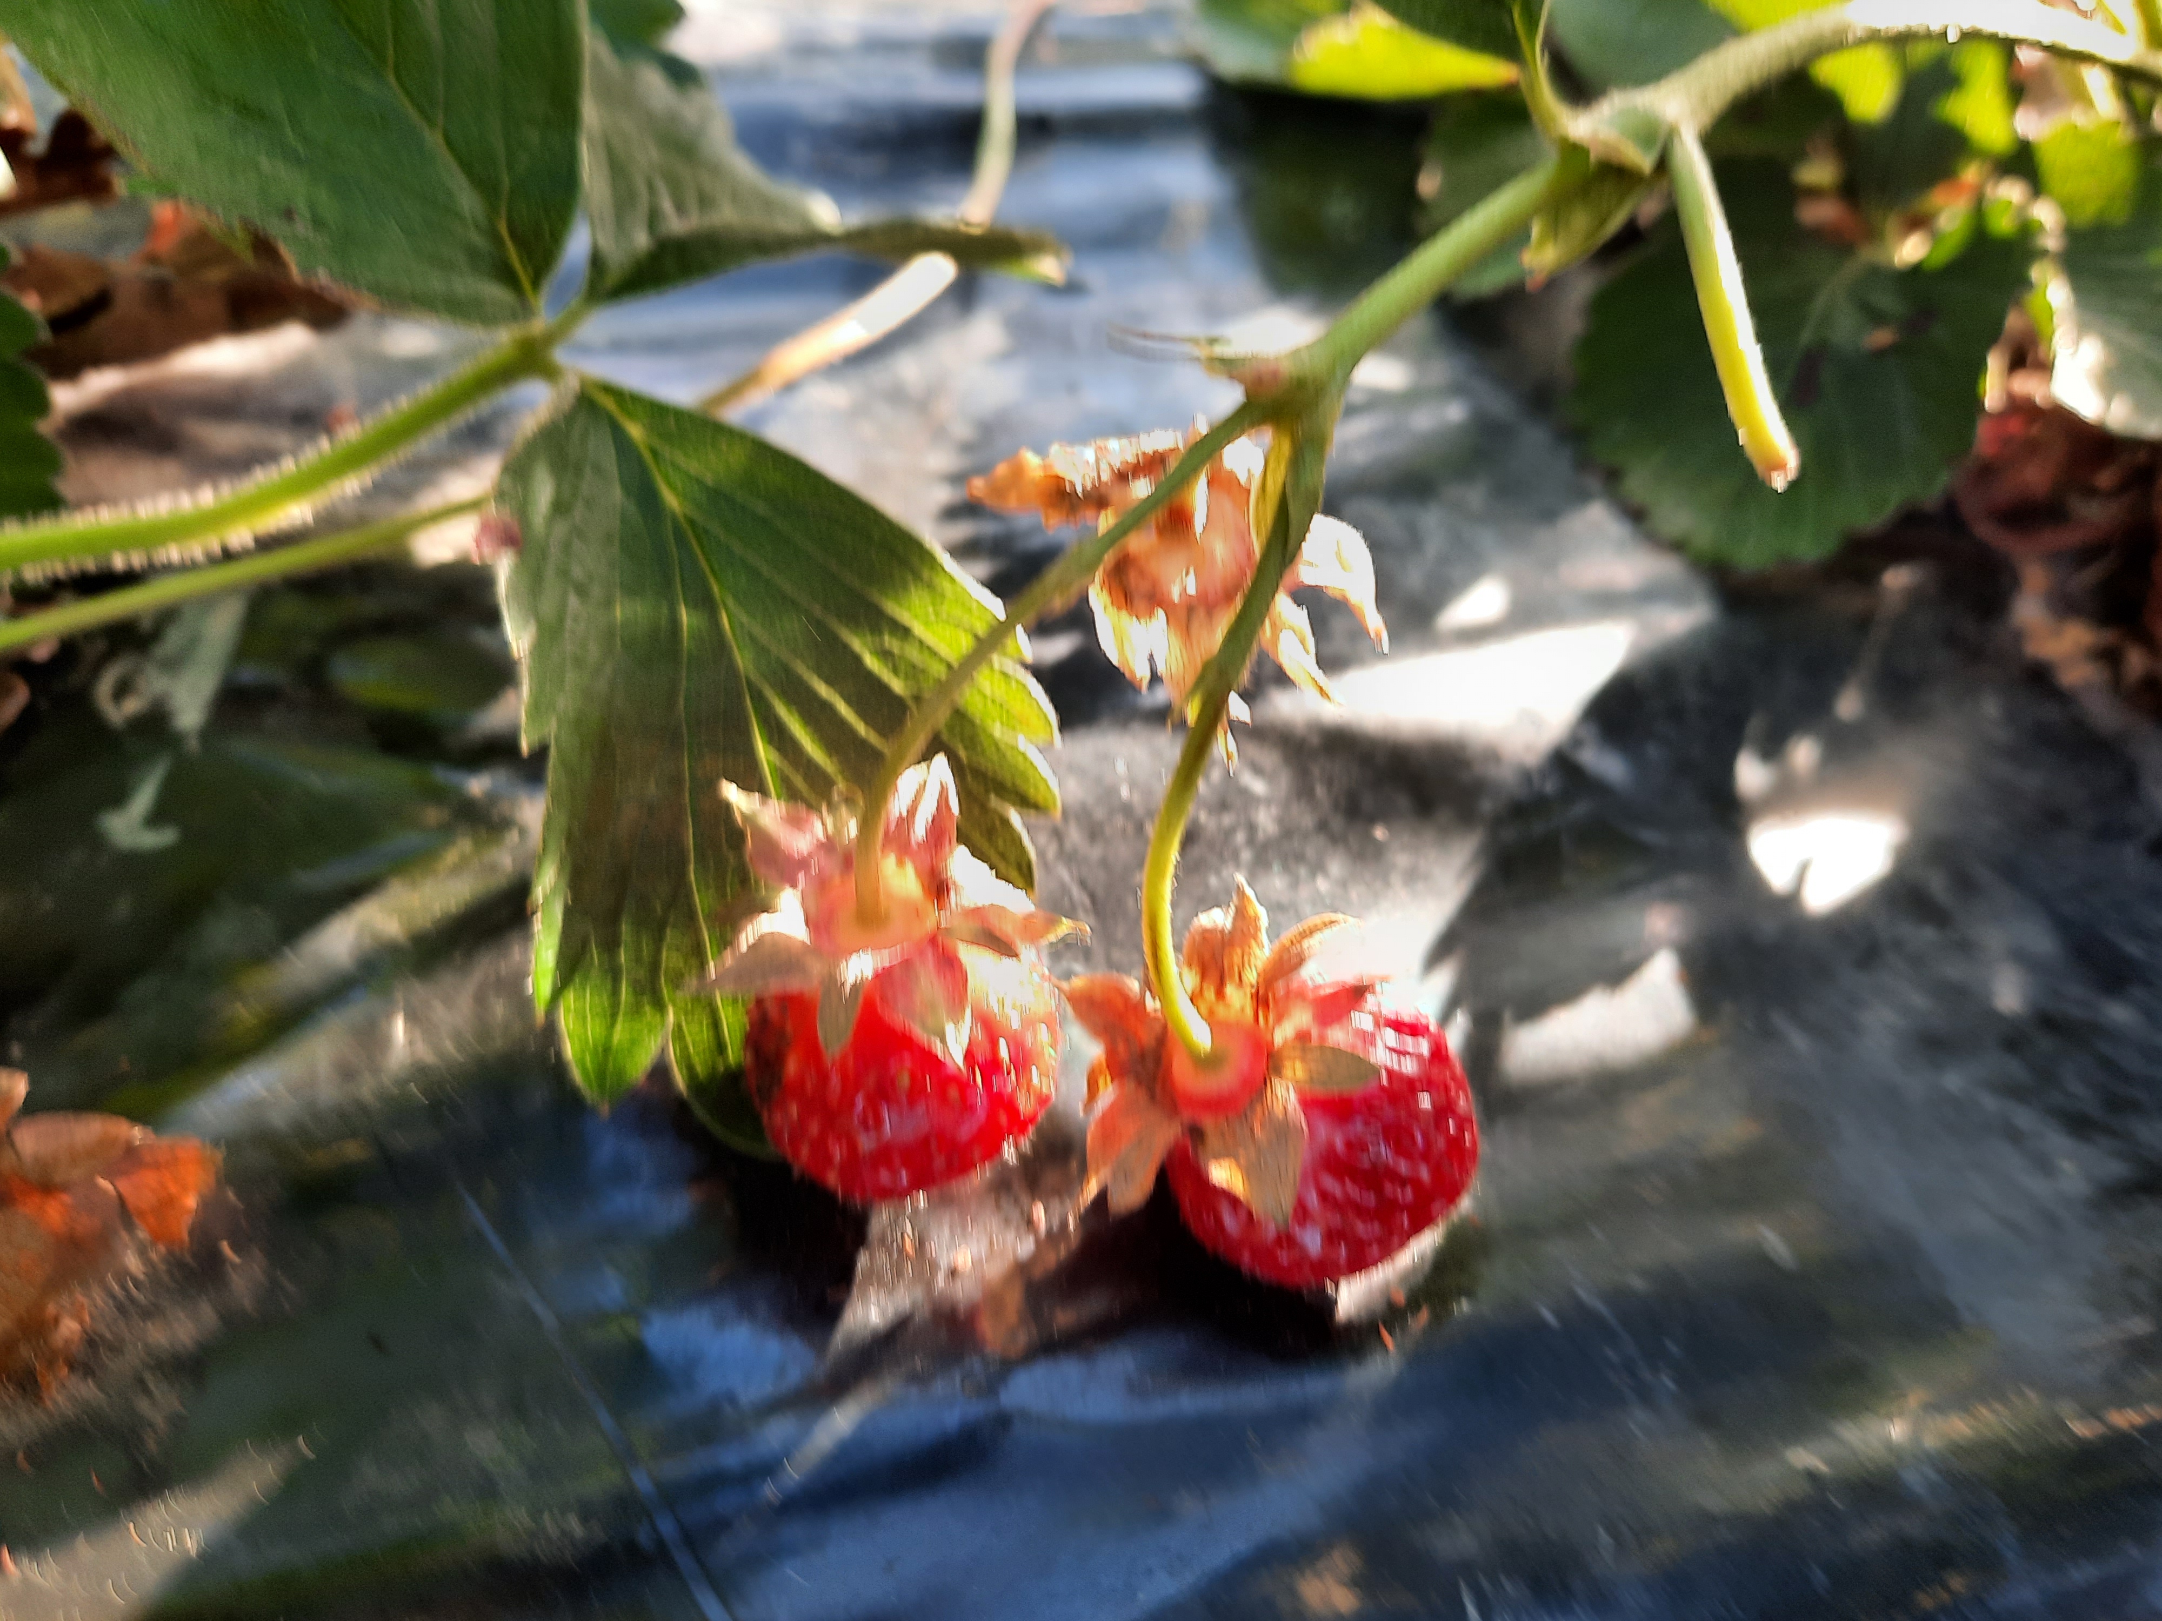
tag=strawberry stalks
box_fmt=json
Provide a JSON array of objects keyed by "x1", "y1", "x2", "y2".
[
  {"x1": 834, "y1": 548, "x2": 1095, "y2": 1018},
  {"x1": 1147, "y1": 613, "x2": 1296, "y2": 1105}
]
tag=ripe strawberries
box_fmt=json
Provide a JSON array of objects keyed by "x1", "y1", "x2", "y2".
[
  {"x1": 744, "y1": 842, "x2": 1073, "y2": 1209},
  {"x1": 1155, "y1": 978, "x2": 1499, "y2": 1296}
]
